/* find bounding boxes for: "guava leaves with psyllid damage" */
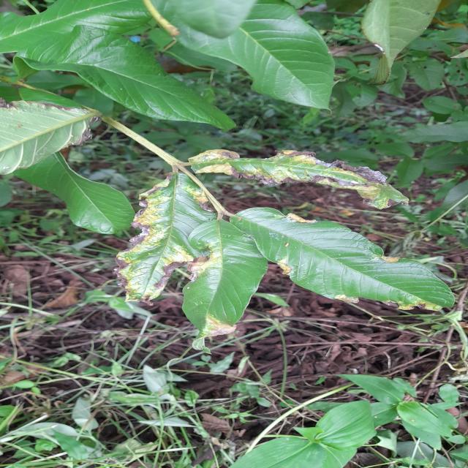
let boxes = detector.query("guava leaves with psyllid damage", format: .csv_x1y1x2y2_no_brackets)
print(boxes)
115,158,215,318
175,141,431,210
227,195,468,316
175,201,275,346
